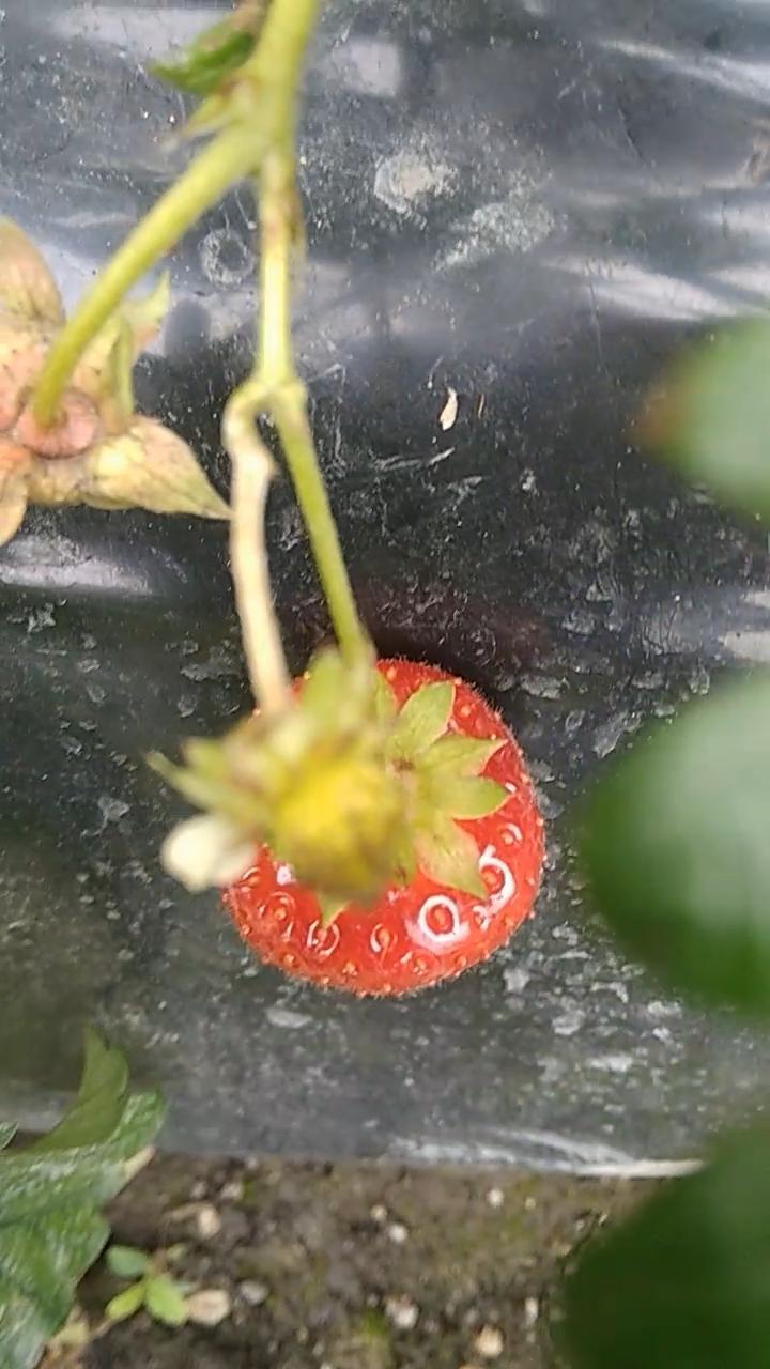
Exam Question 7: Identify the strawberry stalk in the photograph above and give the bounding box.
[192,419,367,818]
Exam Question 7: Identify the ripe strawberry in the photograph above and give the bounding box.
[191,650,555,993]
